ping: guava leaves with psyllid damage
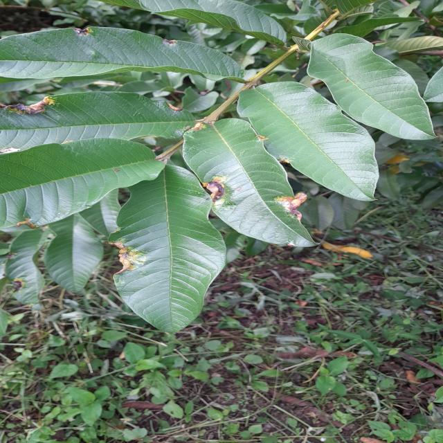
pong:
[109,169,233,341]
[188,118,329,255]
